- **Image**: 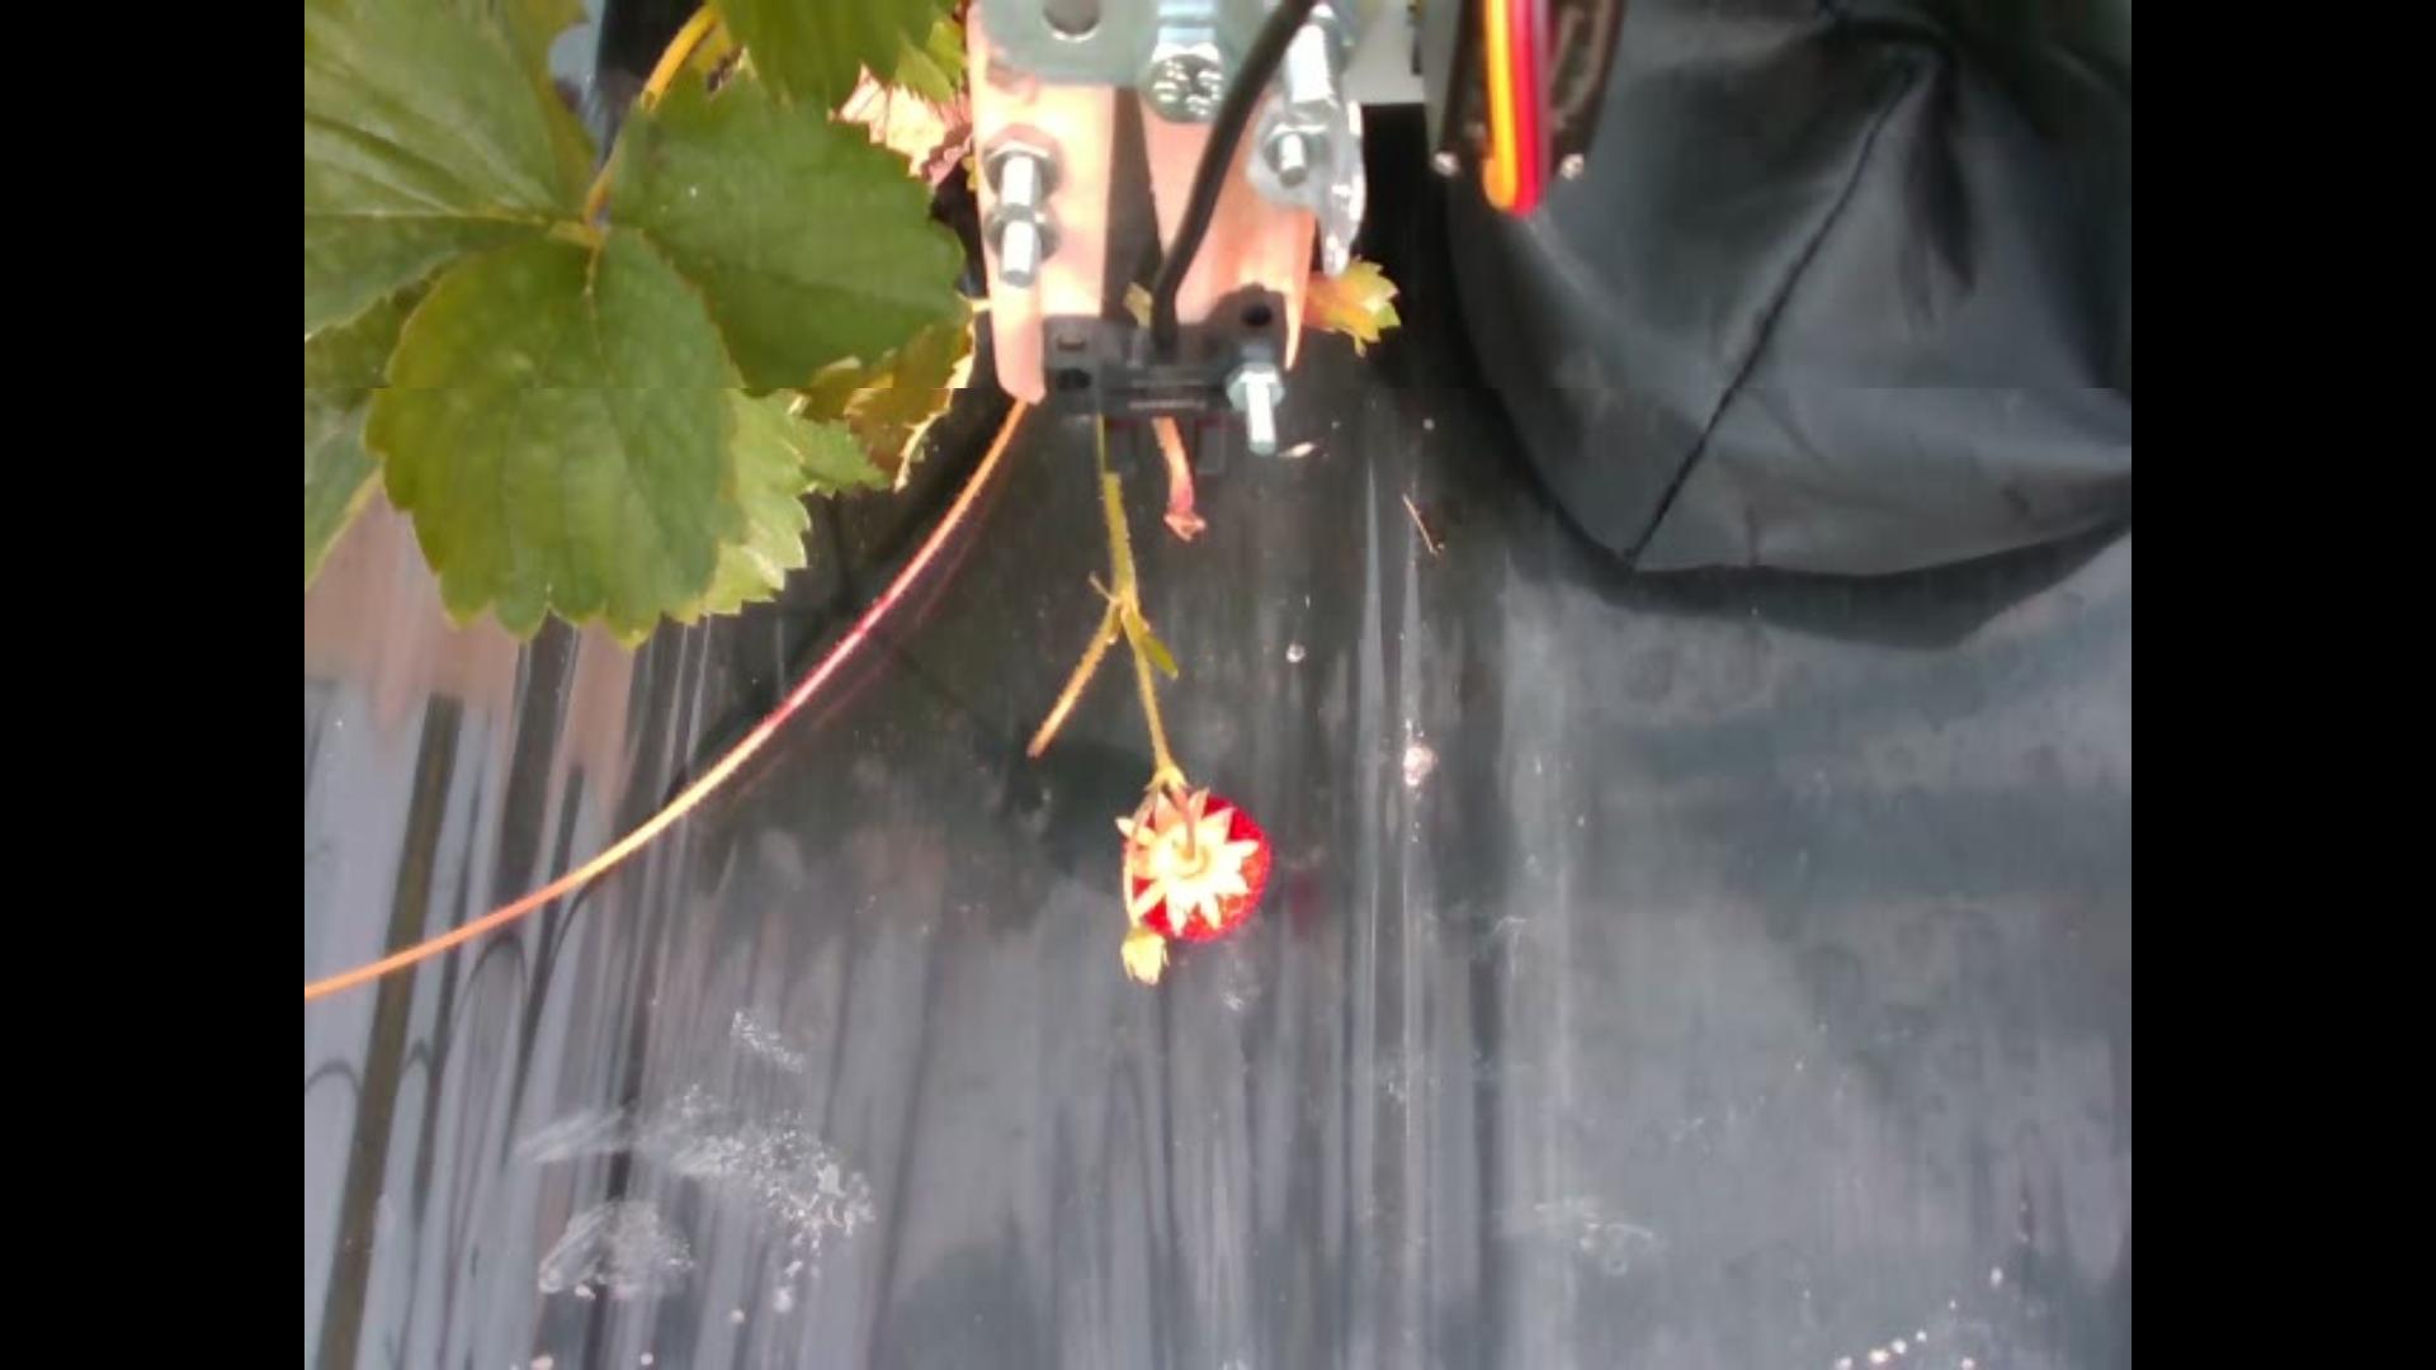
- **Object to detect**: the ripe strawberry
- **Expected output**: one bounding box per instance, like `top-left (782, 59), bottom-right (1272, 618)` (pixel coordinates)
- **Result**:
top-left (1112, 756), bottom-right (1286, 959)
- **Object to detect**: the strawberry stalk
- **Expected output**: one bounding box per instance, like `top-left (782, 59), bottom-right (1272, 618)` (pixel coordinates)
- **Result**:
top-left (1112, 660), bottom-right (1221, 854)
